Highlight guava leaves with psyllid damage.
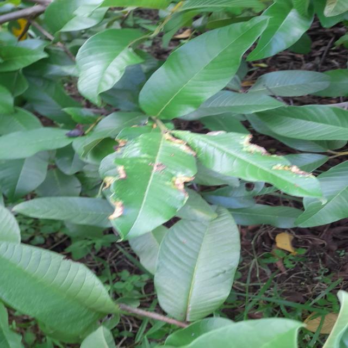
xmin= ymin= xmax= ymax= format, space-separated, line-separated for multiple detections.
xmin=171 ymin=118 xmax=337 ymax=206
xmin=93 ymin=125 xmax=211 ymax=243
